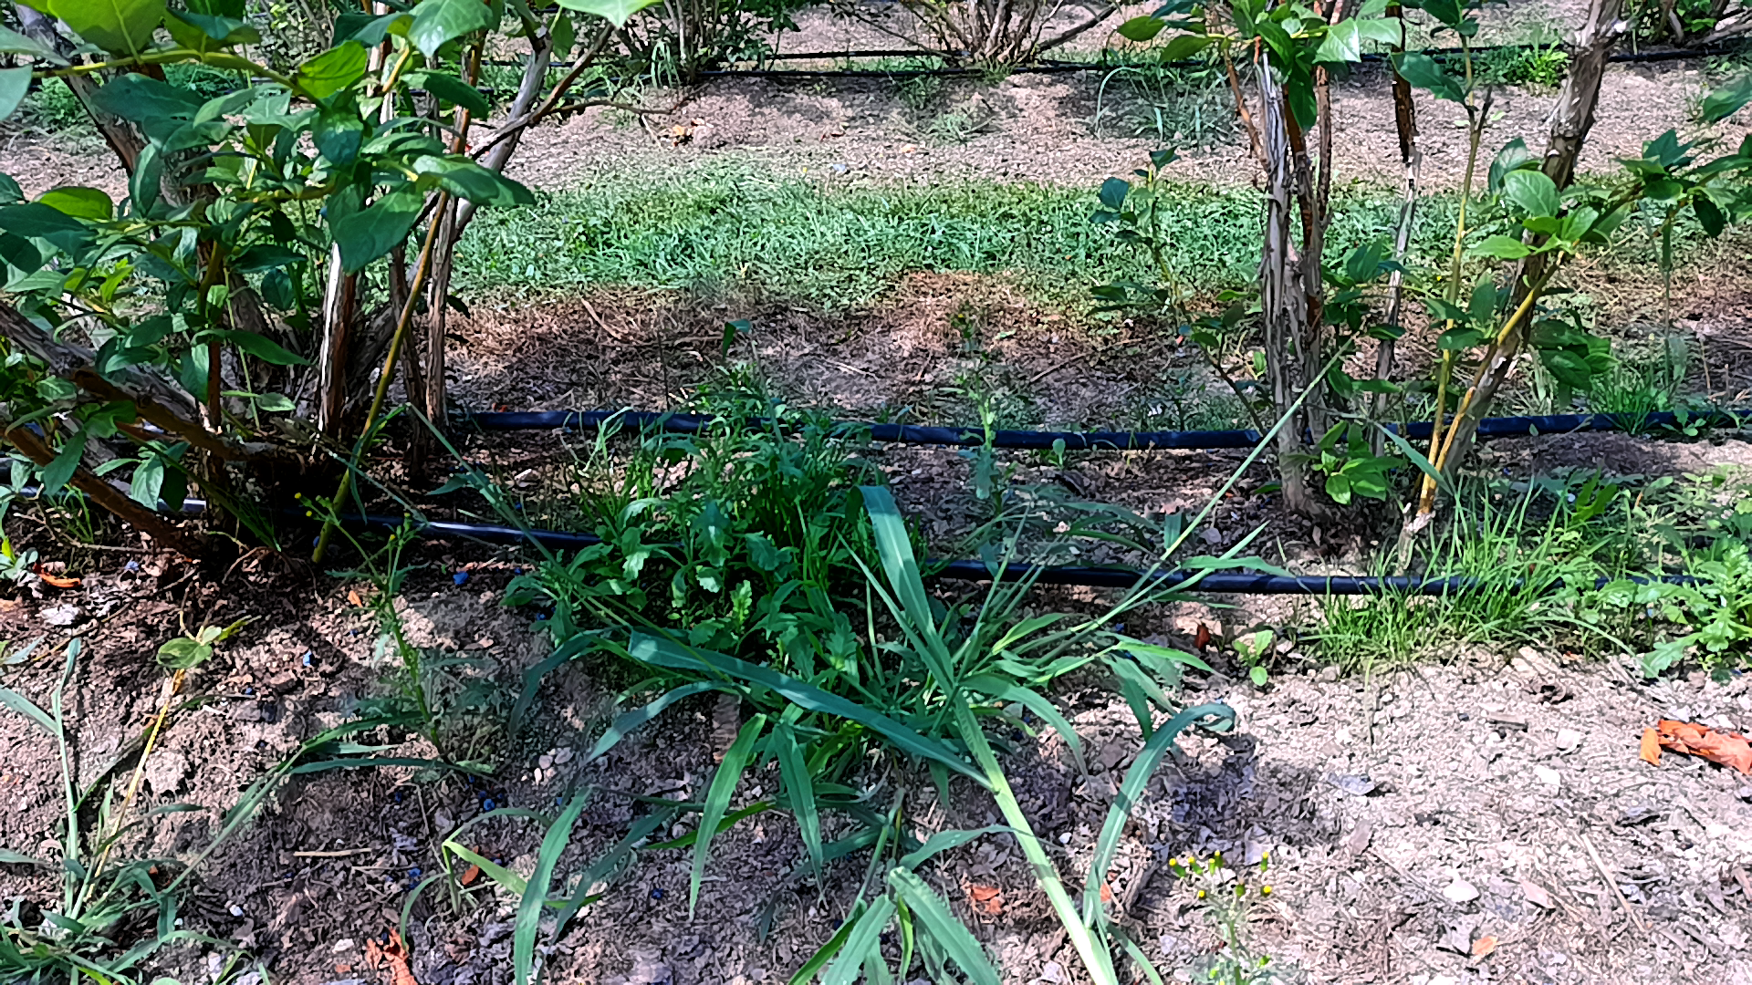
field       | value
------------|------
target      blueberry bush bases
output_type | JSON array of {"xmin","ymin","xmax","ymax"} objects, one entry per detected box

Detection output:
[
  {"xmin": 606, "ymin": 9, "xmax": 780, "ymax": 104},
  {"xmin": 1209, "ymin": 292, "xmax": 1547, "ymax": 656},
  {"xmin": 905, "ymin": 0, "xmax": 1079, "ymax": 95},
  {"xmin": 40, "ymin": 253, "xmax": 477, "ymax": 626}
]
